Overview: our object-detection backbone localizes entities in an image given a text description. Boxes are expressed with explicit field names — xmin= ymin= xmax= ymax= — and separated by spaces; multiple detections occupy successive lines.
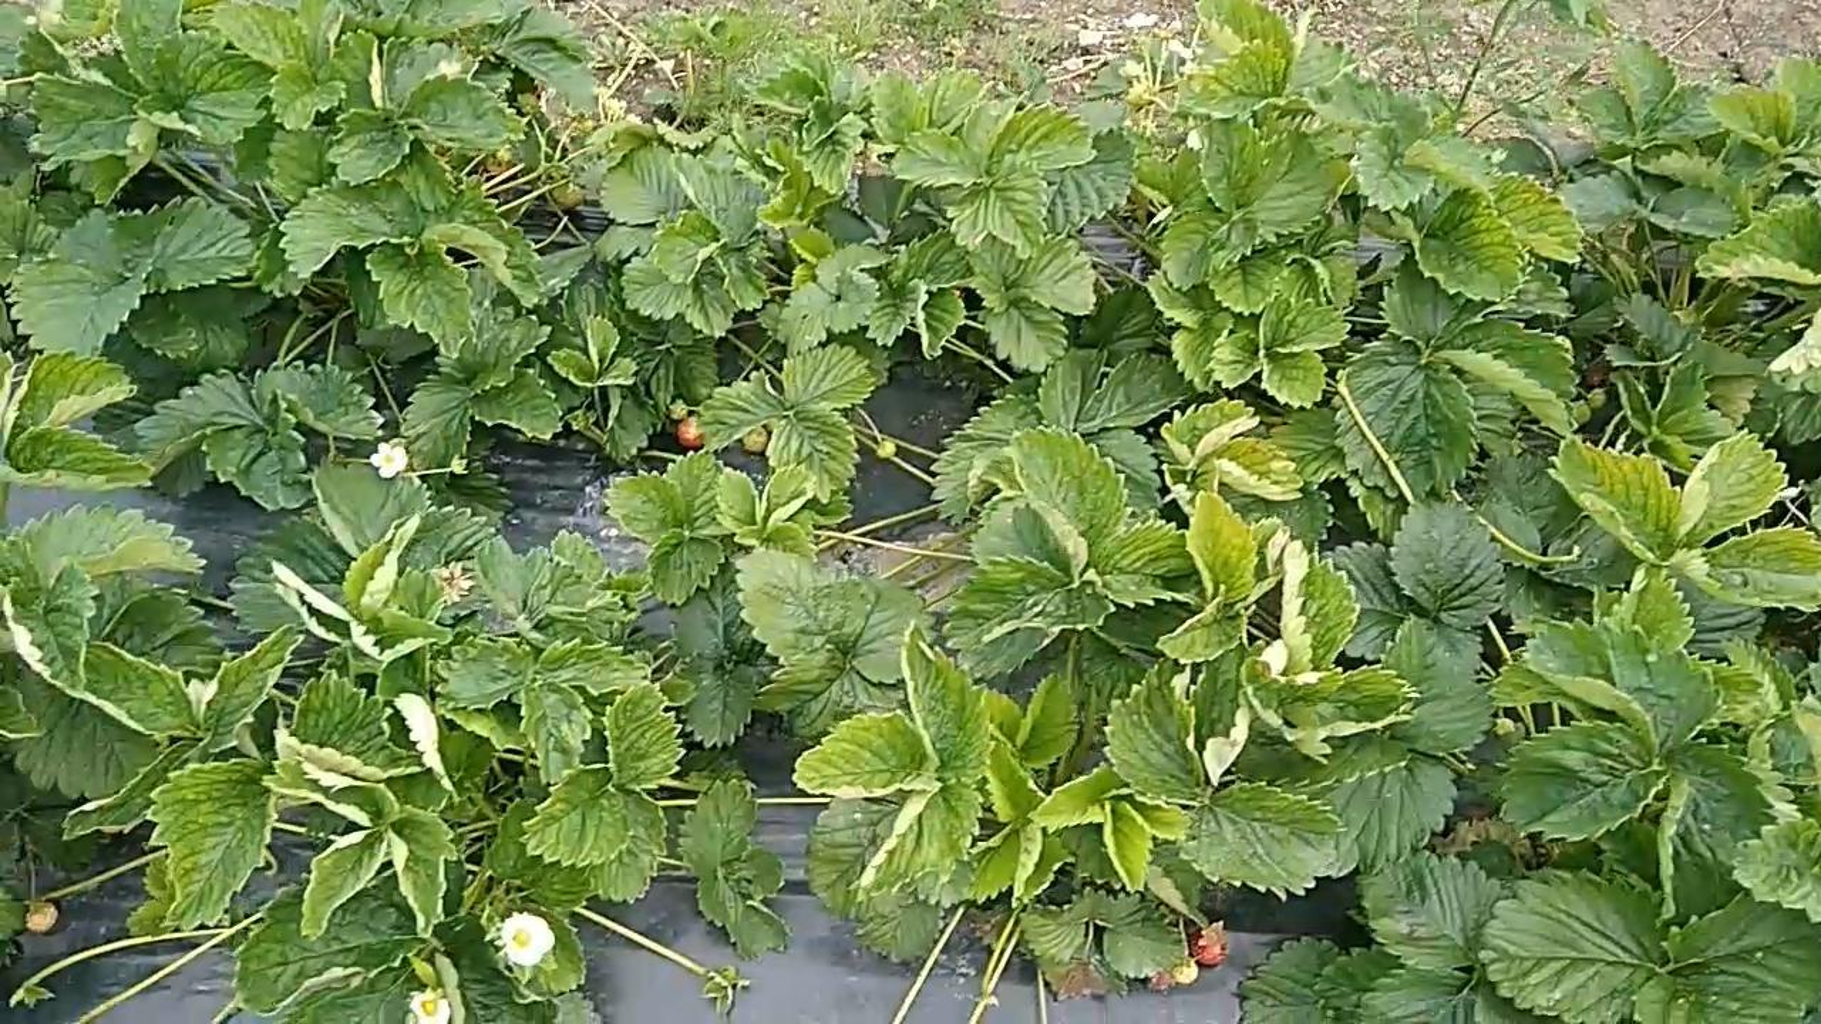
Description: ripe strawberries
xmin=679 ymin=417 xmax=711 ymax=445
xmin=1189 ymin=927 xmax=1235 ymax=966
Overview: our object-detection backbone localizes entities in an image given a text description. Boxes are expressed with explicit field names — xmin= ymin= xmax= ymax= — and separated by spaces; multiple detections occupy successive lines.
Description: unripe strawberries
xmin=552 ymin=184 xmax=582 ymax=210
xmin=875 ymin=439 xmax=901 ymax=459
xmin=24 ymin=902 xmax=61 ymax=934
xmin=1170 ymin=959 xmax=1196 ymax=983
xmin=740 ymin=426 xmax=772 ymax=453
